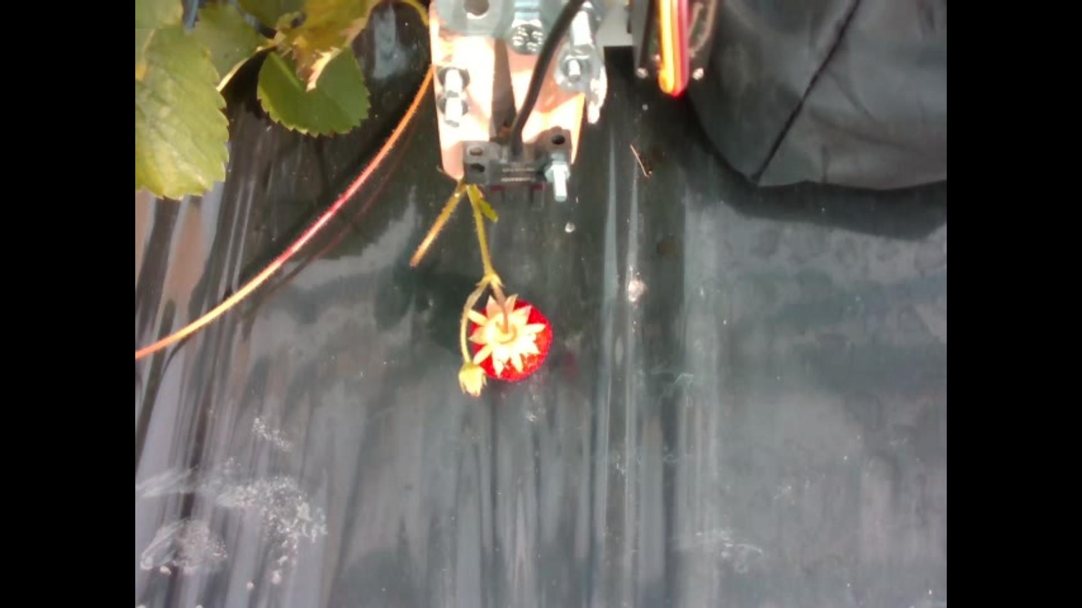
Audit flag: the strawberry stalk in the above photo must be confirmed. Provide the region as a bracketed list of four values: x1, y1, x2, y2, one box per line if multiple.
[469, 207, 521, 343]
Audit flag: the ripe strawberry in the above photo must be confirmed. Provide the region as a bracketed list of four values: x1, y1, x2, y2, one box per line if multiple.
[455, 287, 569, 396]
